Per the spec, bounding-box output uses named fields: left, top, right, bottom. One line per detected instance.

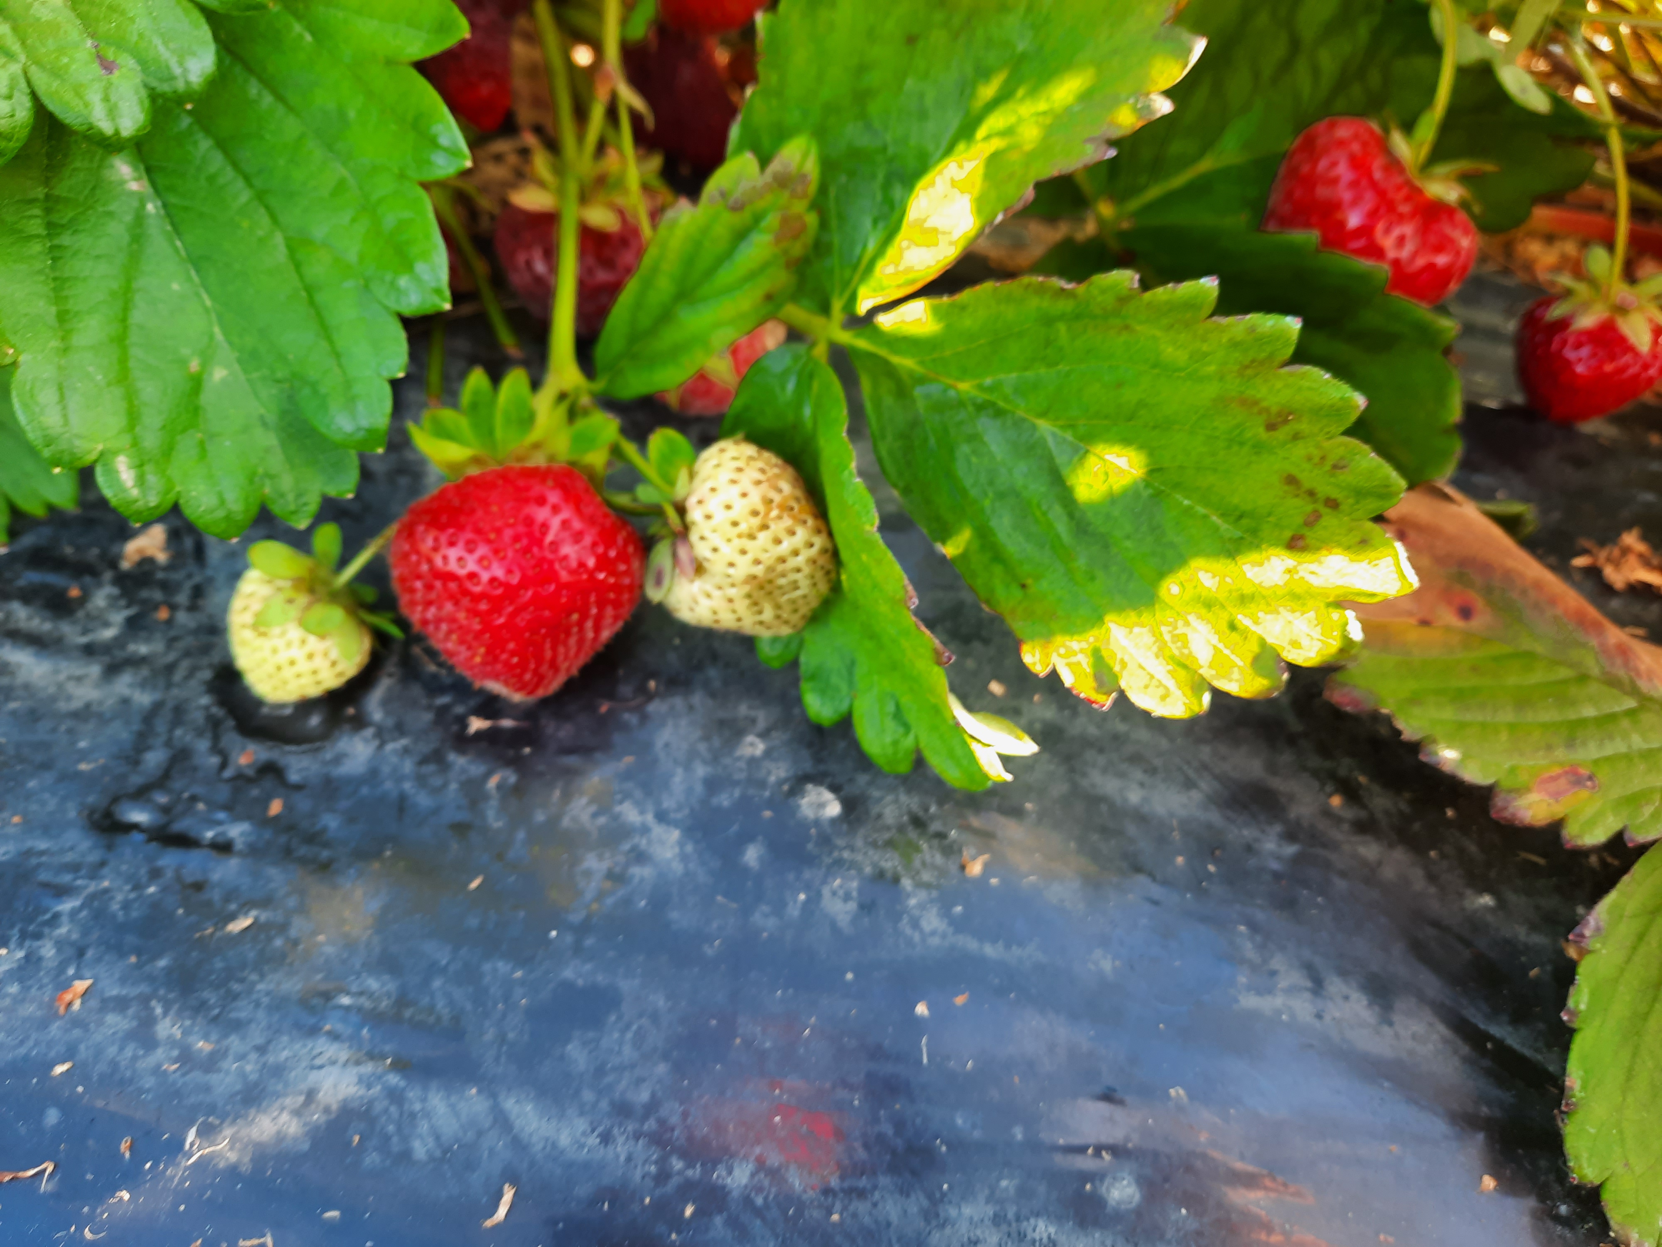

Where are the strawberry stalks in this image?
left=1383, top=8, right=1474, bottom=191
left=495, top=344, right=578, bottom=499
left=312, top=510, right=413, bottom=622
left=1578, top=56, right=1632, bottom=314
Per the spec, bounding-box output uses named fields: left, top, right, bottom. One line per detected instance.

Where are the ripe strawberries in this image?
left=1241, top=124, right=1477, bottom=309
left=506, top=185, right=682, bottom=305
left=393, top=461, right=630, bottom=683
left=1537, top=268, right=1662, bottom=412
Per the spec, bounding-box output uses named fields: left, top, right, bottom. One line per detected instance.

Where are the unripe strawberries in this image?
left=655, top=449, right=846, bottom=633
left=228, top=567, right=364, bottom=696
